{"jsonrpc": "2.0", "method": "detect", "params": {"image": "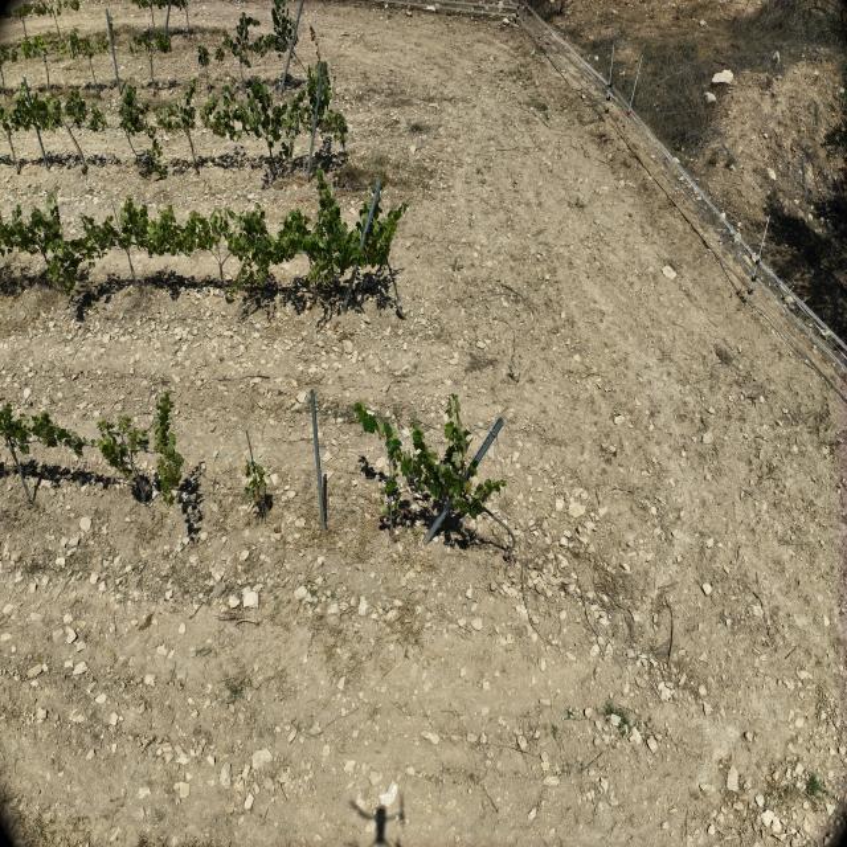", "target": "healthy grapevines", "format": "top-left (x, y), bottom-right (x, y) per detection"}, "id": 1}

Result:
top-left (351, 388), bottom-right (509, 557)
top-left (235, 455), bottom-right (279, 530)
top-left (0, 398), bottom-right (90, 521)
top-left (98, 388), bottom-right (193, 516)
